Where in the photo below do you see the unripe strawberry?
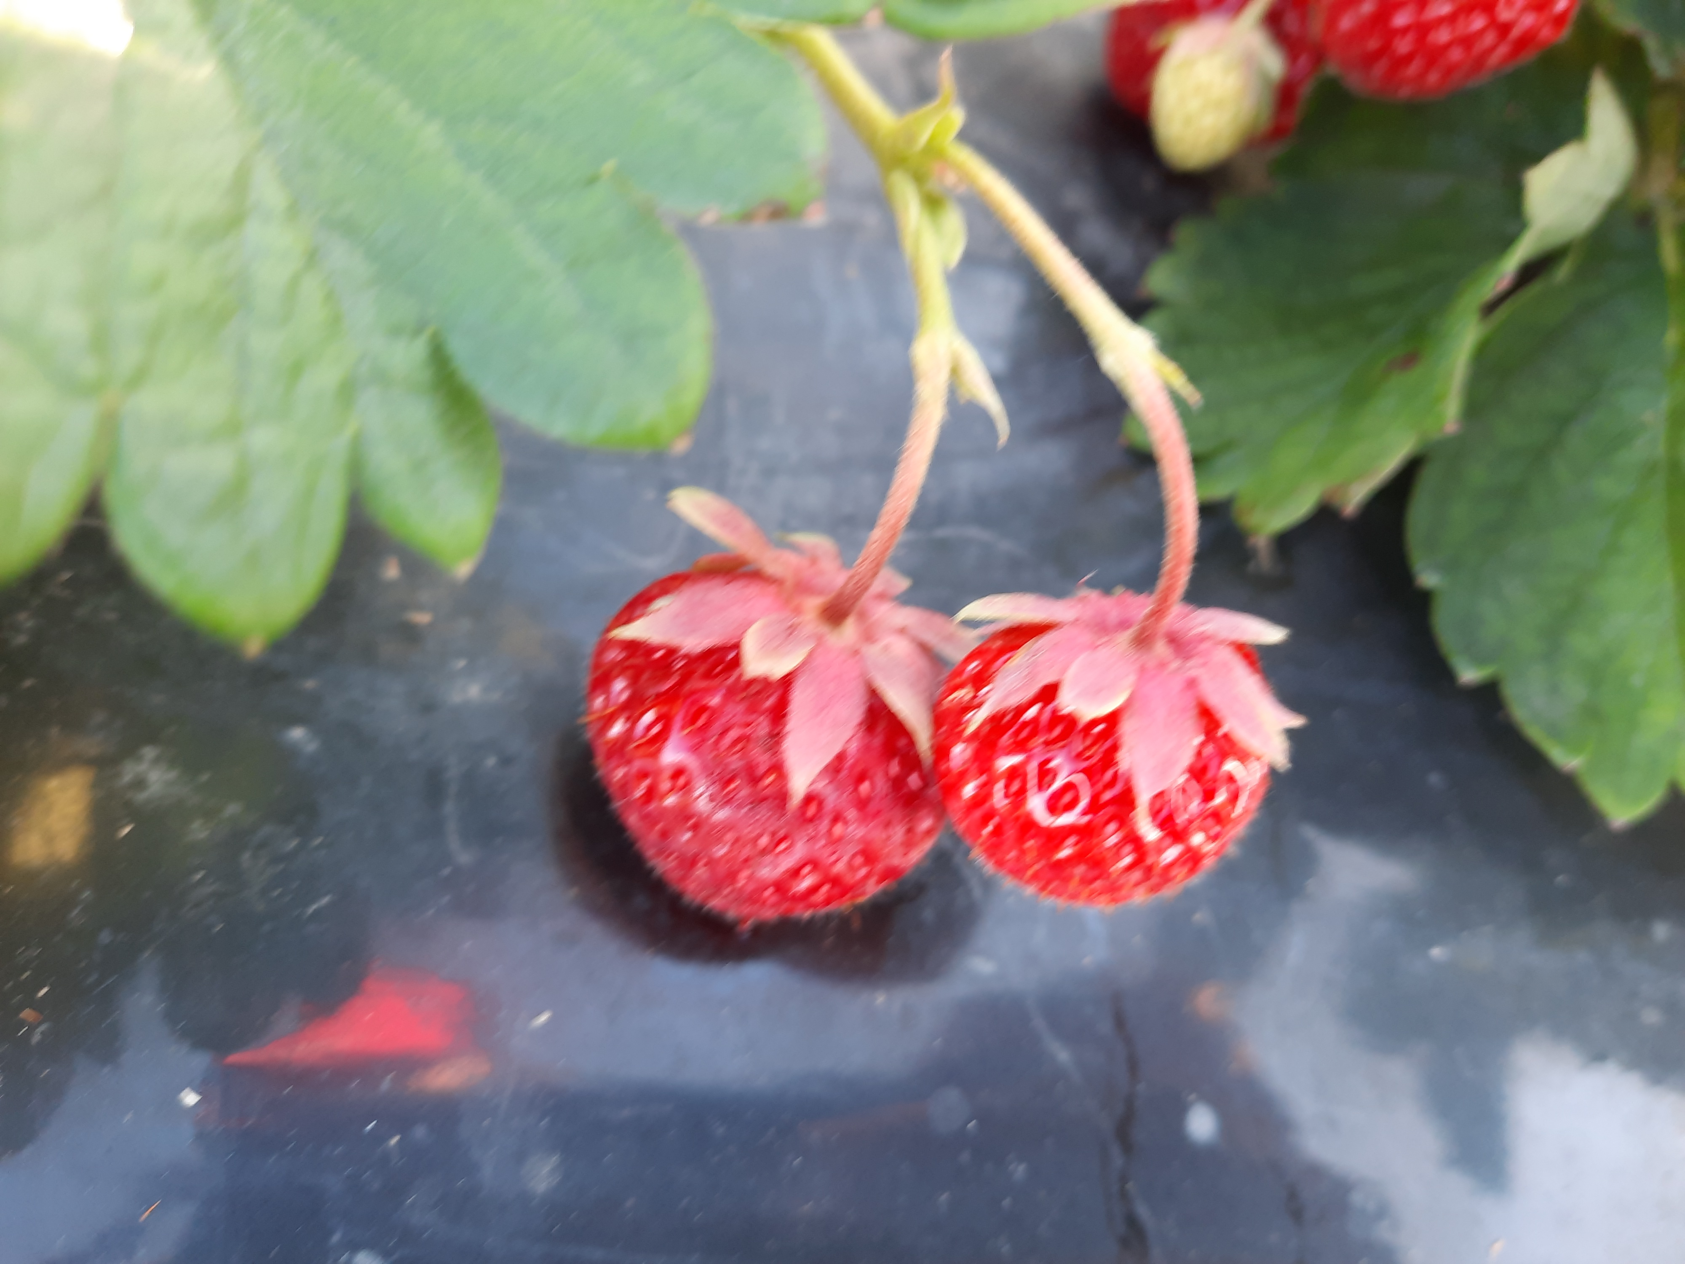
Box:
[1140,12,1299,172]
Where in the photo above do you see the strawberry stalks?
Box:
[1105,441,1219,669]
[794,443,917,683]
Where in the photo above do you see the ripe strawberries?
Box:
[1091,9,1311,201]
[557,518,945,966]
[948,589,1297,906]
[1305,0,1576,115]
